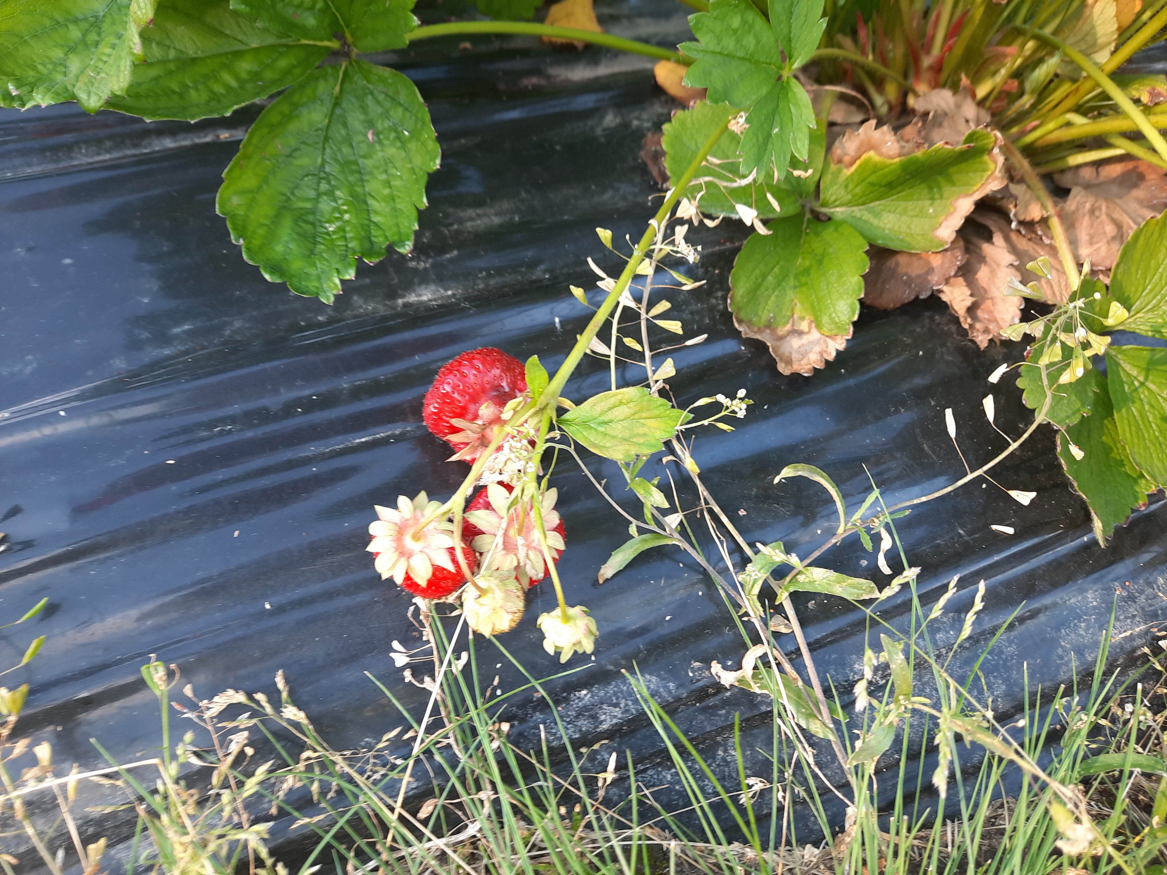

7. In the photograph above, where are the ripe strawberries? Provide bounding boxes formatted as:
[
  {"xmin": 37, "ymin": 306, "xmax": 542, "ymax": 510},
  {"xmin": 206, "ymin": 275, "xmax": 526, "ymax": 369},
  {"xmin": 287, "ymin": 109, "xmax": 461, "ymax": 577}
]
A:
[
  {"xmin": 467, "ymin": 481, "xmax": 567, "ymax": 586},
  {"xmin": 368, "ymin": 510, "xmax": 472, "ymax": 599},
  {"xmin": 428, "ymin": 352, "xmax": 542, "ymax": 460}
]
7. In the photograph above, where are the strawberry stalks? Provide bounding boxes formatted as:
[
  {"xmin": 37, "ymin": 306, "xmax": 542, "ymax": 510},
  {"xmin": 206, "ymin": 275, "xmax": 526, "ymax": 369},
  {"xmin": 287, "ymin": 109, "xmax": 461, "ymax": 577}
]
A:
[
  {"xmin": 502, "ymin": 458, "xmax": 537, "ymax": 550},
  {"xmin": 529, "ymin": 514, "xmax": 578, "ymax": 623},
  {"xmin": 404, "ymin": 477, "xmax": 476, "ymax": 546},
  {"xmin": 449, "ymin": 495, "xmax": 496, "ymax": 600}
]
